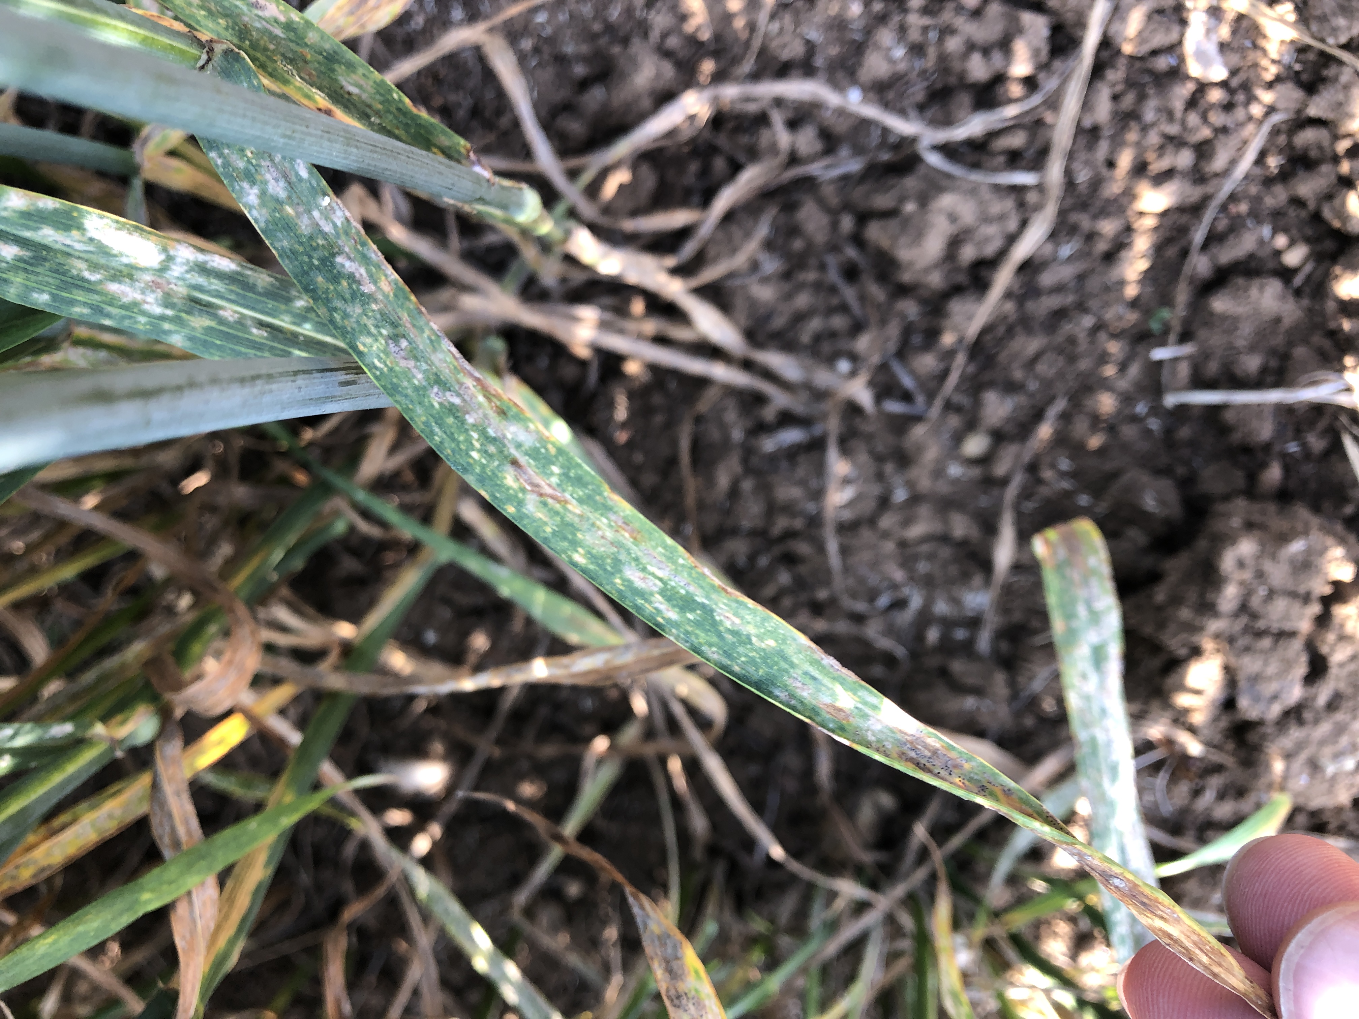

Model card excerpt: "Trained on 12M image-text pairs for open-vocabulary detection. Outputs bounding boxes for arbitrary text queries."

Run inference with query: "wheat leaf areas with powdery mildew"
[634,897,736,1012]
[195,100,1074,888]
[169,18,469,160]
[1038,508,1160,968]
[0,199,336,360]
